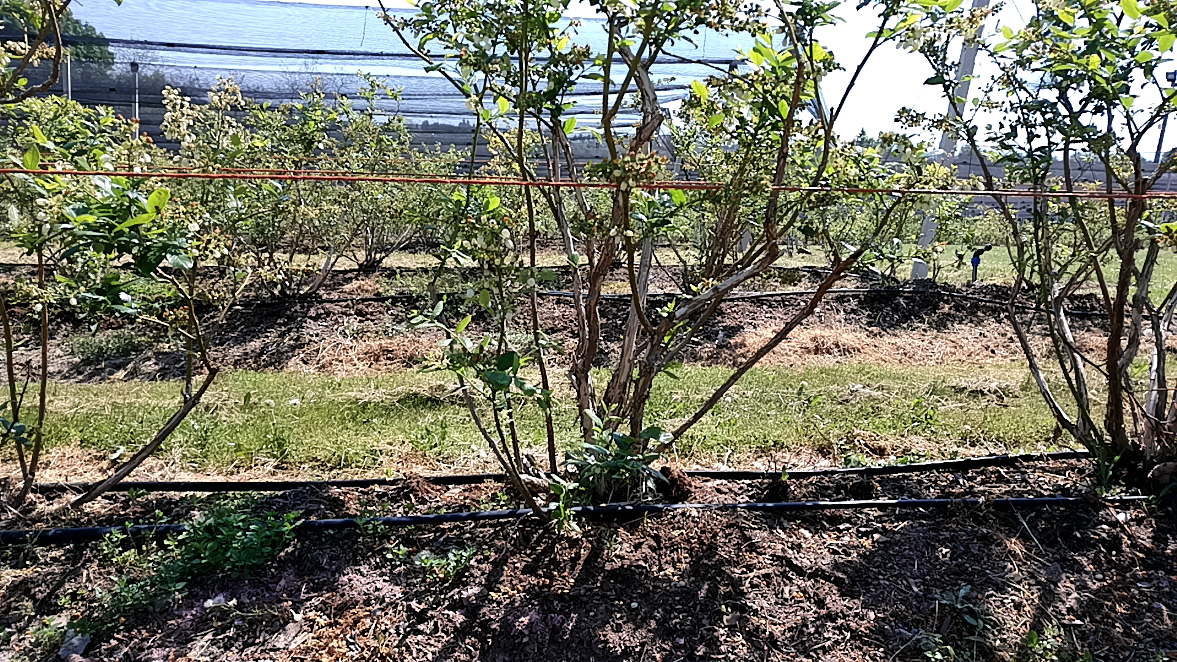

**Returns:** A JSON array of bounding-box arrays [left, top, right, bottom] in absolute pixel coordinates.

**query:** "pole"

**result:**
[[904, 3, 988, 285]]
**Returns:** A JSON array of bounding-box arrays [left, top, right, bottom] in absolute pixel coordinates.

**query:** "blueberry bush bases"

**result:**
[[257, 259, 340, 314], [676, 254, 757, 311], [412, 230, 447, 256], [567, 236, 642, 276], [348, 240, 389, 280], [1014, 341, 1177, 511], [0, 391, 83, 545], [467, 376, 699, 553]]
